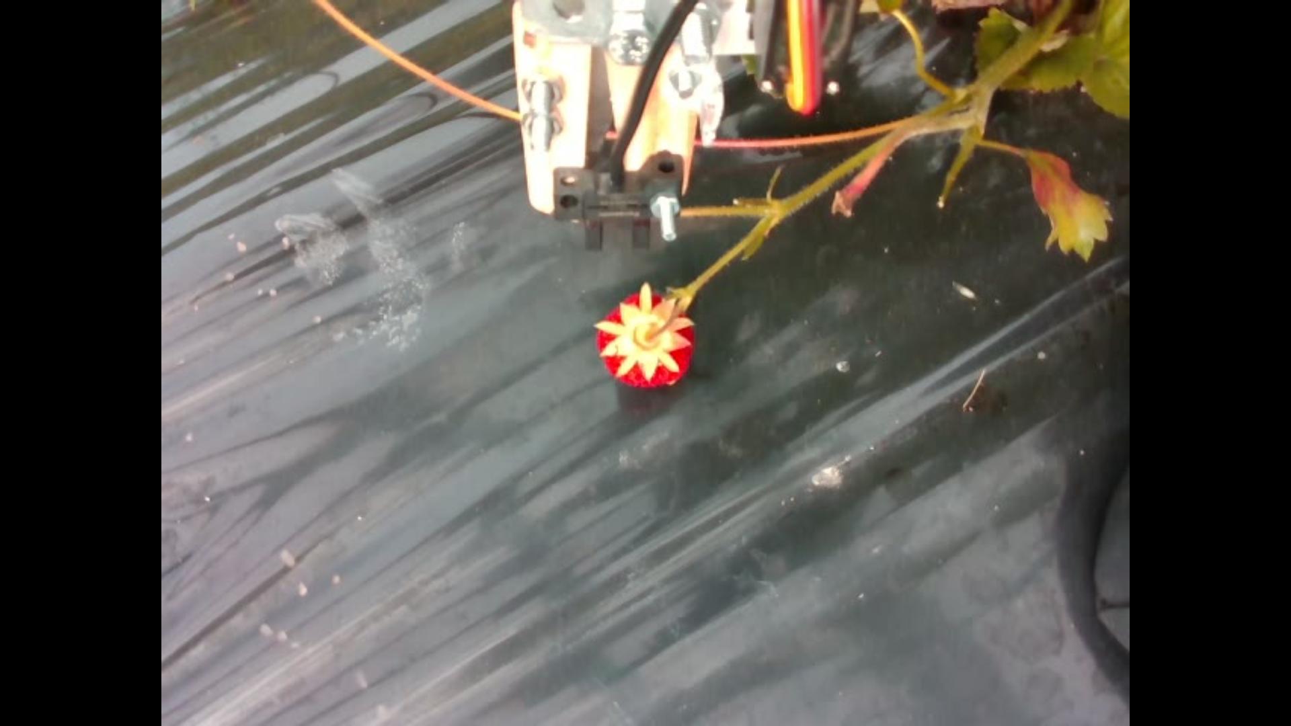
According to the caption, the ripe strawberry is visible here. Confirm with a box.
[585,284,710,394]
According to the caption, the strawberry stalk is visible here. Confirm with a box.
[641,237,730,352]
